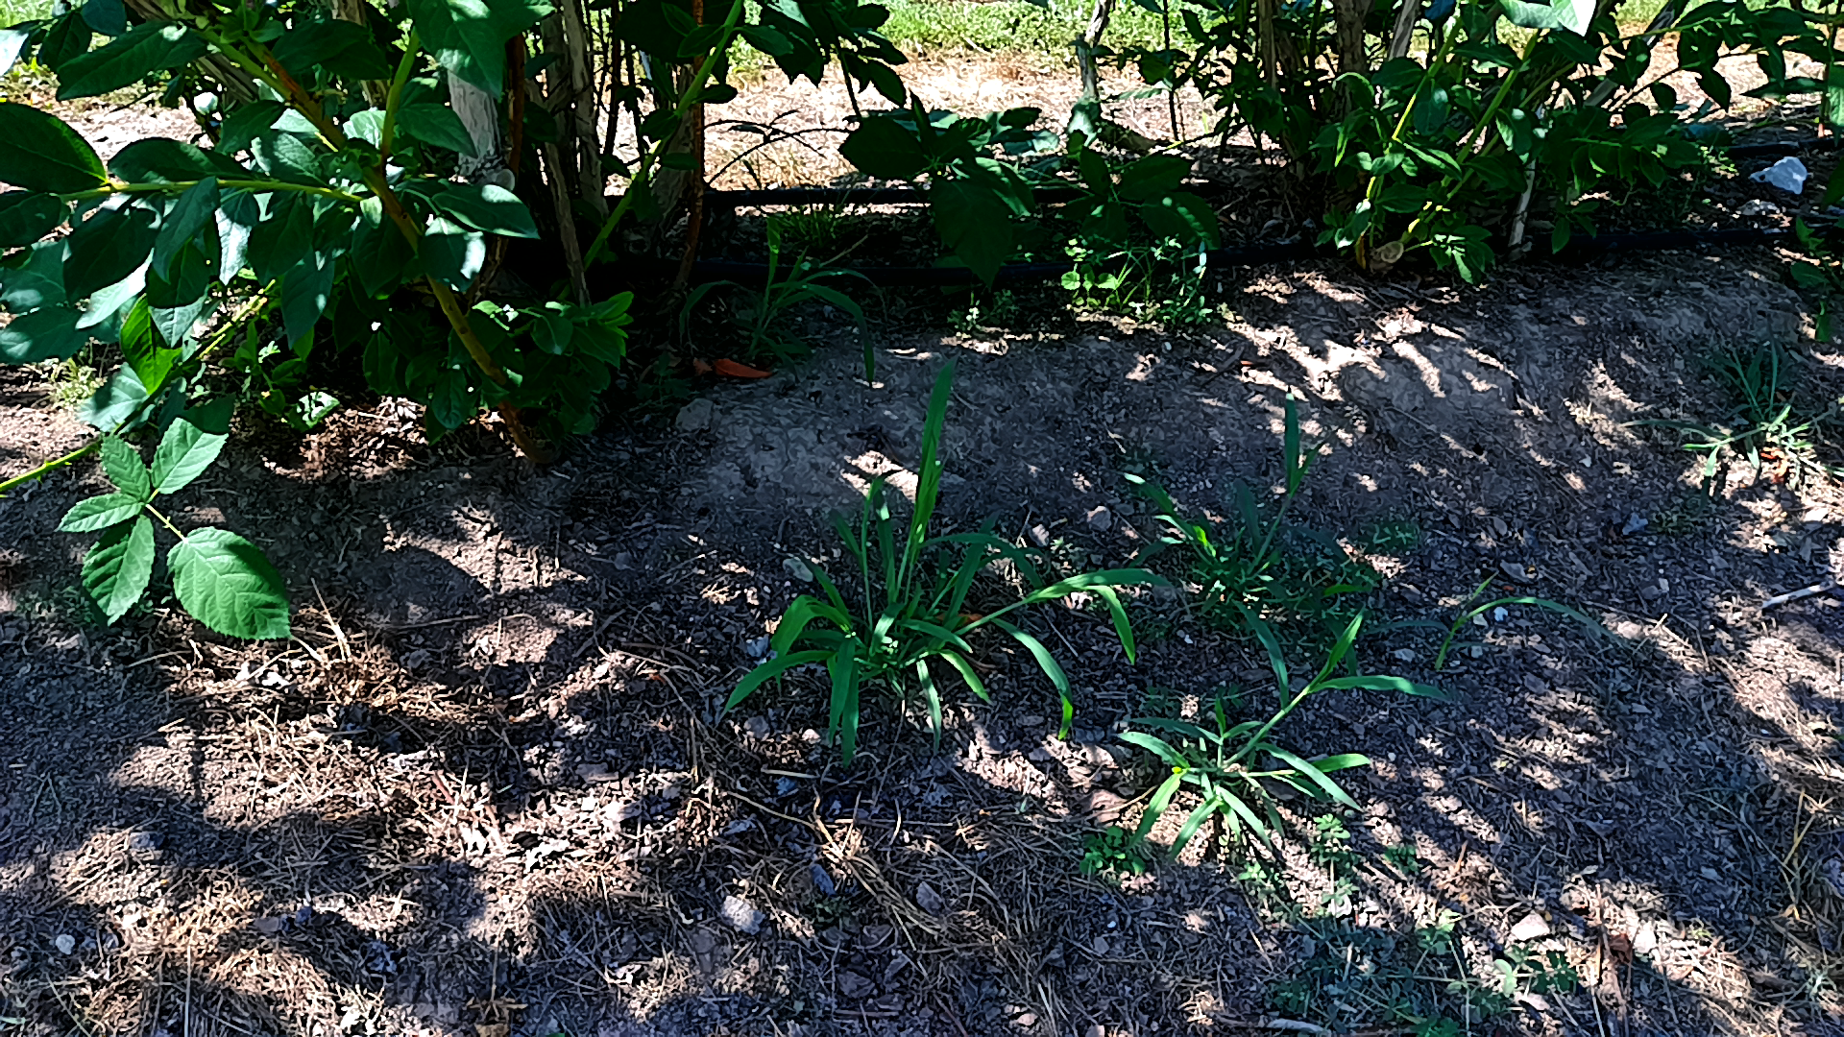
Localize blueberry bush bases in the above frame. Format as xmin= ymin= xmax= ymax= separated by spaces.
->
xmin=1213 ymin=16 xmax=1592 ymax=320
xmin=154 ymin=2 xmax=791 ymax=536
